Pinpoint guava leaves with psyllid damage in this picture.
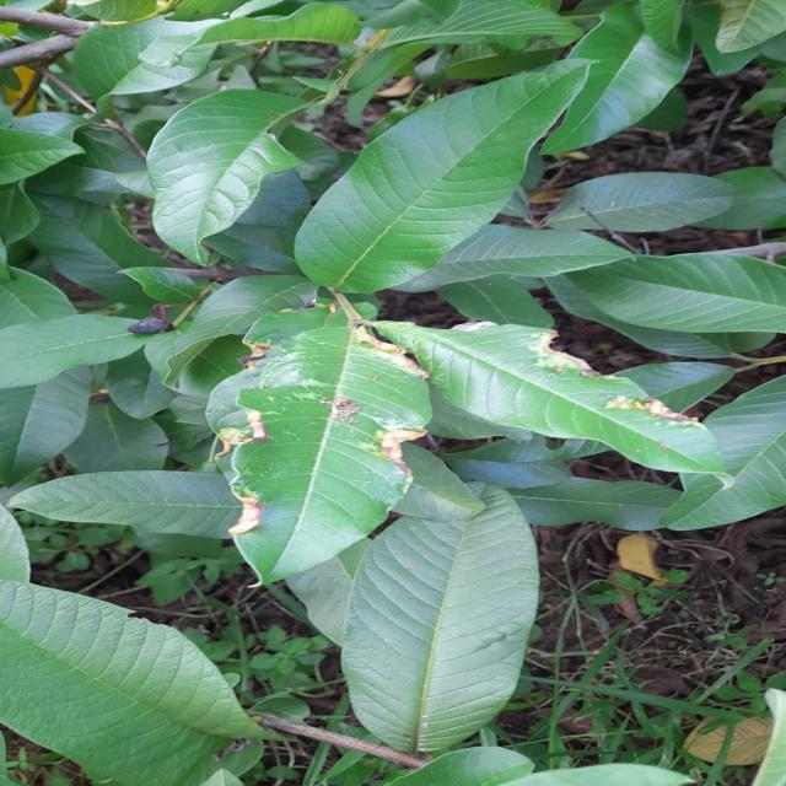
[357,308,762,502]
[147,300,453,596]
